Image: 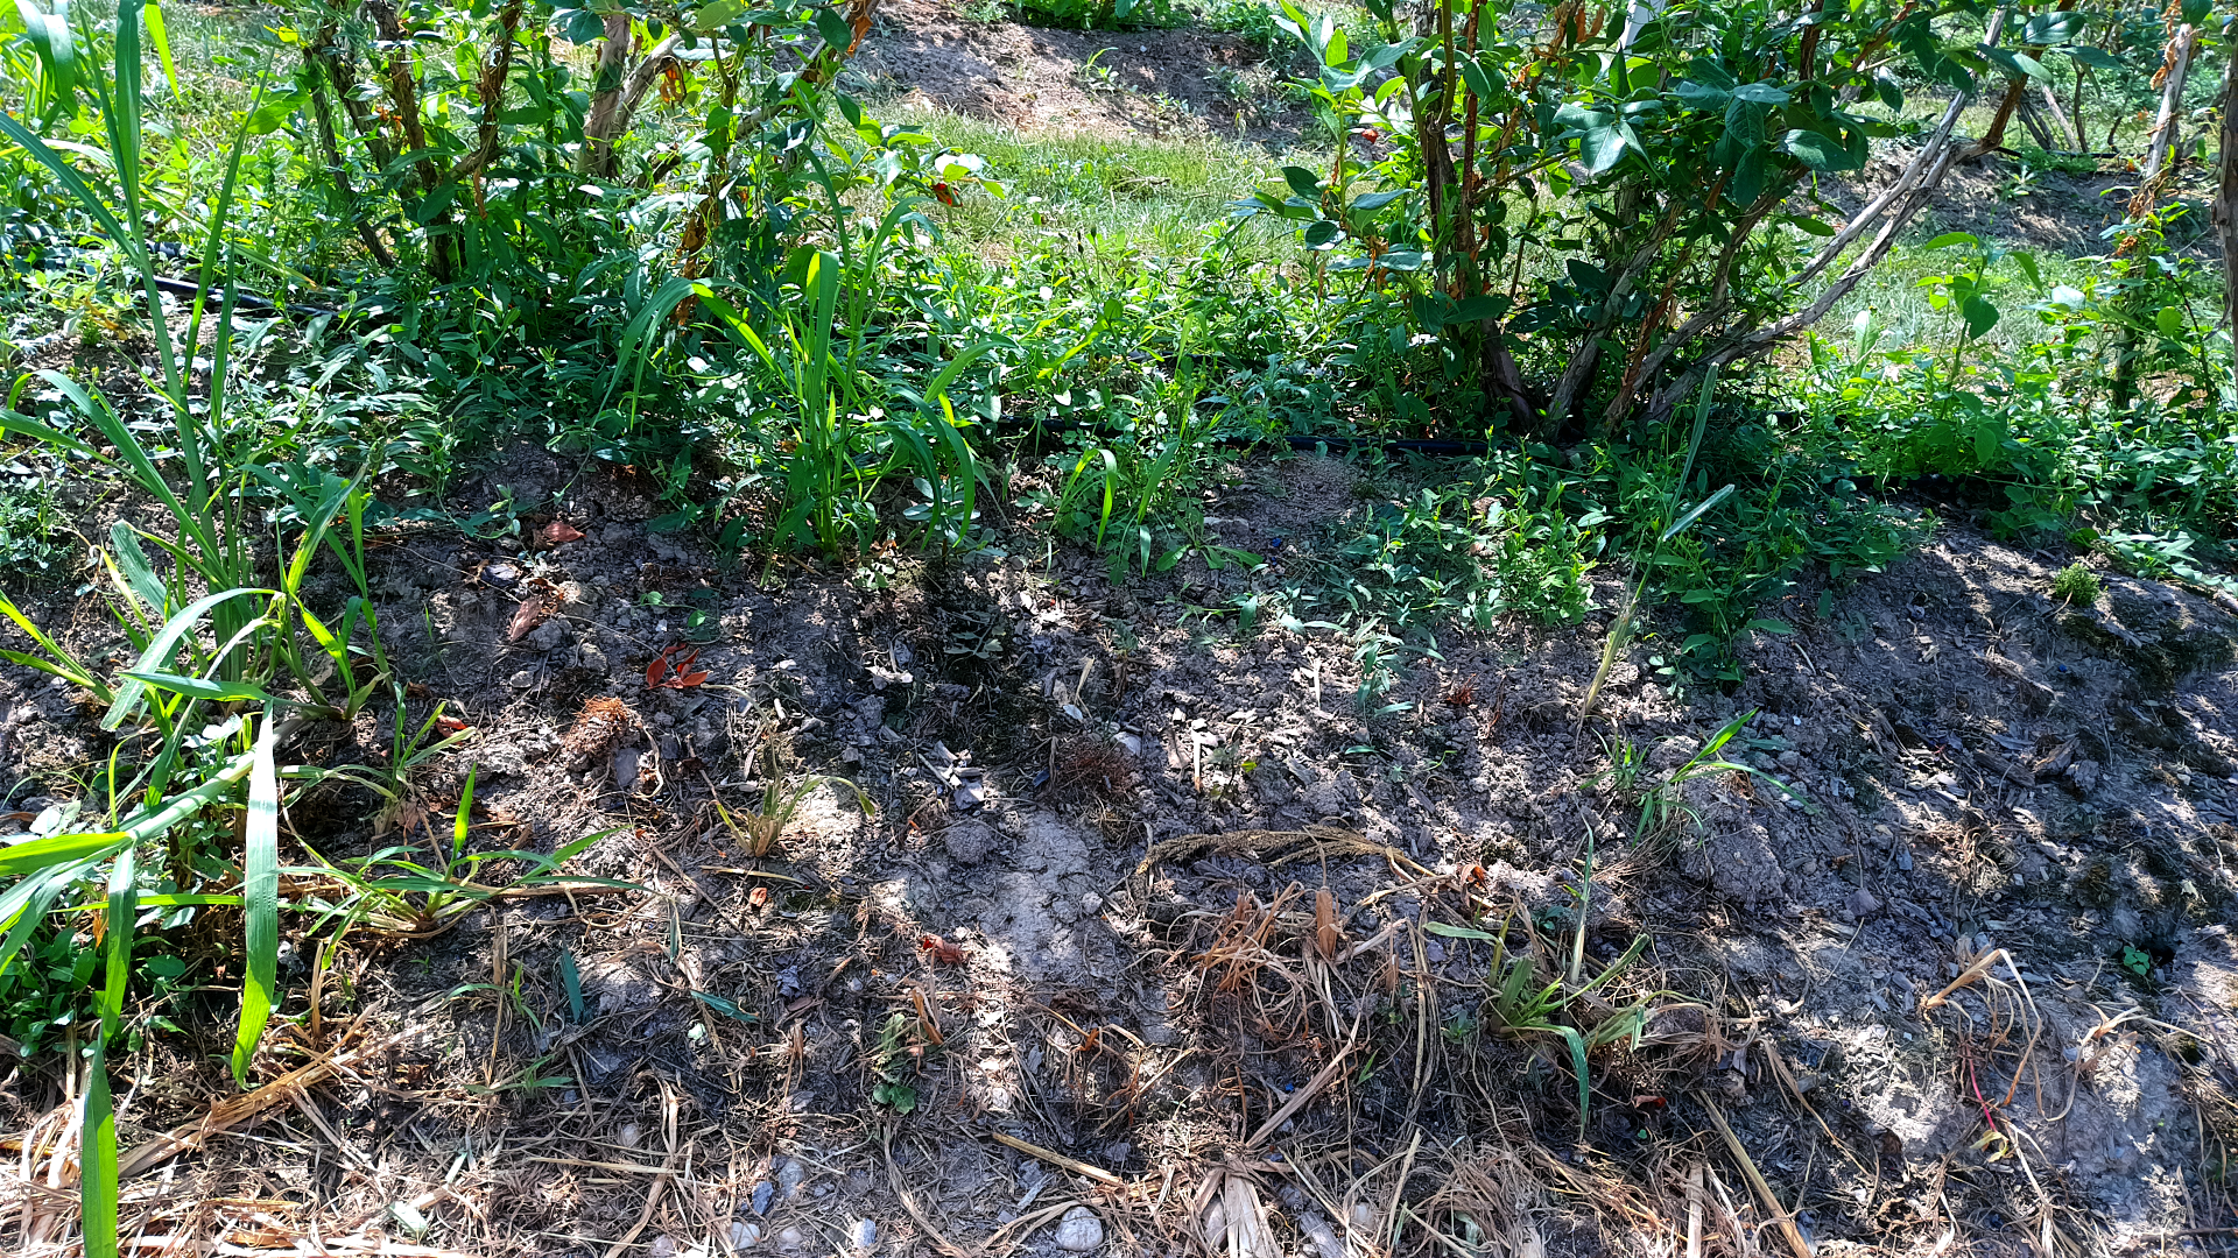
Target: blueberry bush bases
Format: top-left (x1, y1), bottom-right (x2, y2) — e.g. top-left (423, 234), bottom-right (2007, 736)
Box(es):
top-left (2013, 92), bottom-right (2165, 195)
top-left (1347, 214), bottom-right (1872, 560)
top-left (308, 137), bottom-right (869, 479)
